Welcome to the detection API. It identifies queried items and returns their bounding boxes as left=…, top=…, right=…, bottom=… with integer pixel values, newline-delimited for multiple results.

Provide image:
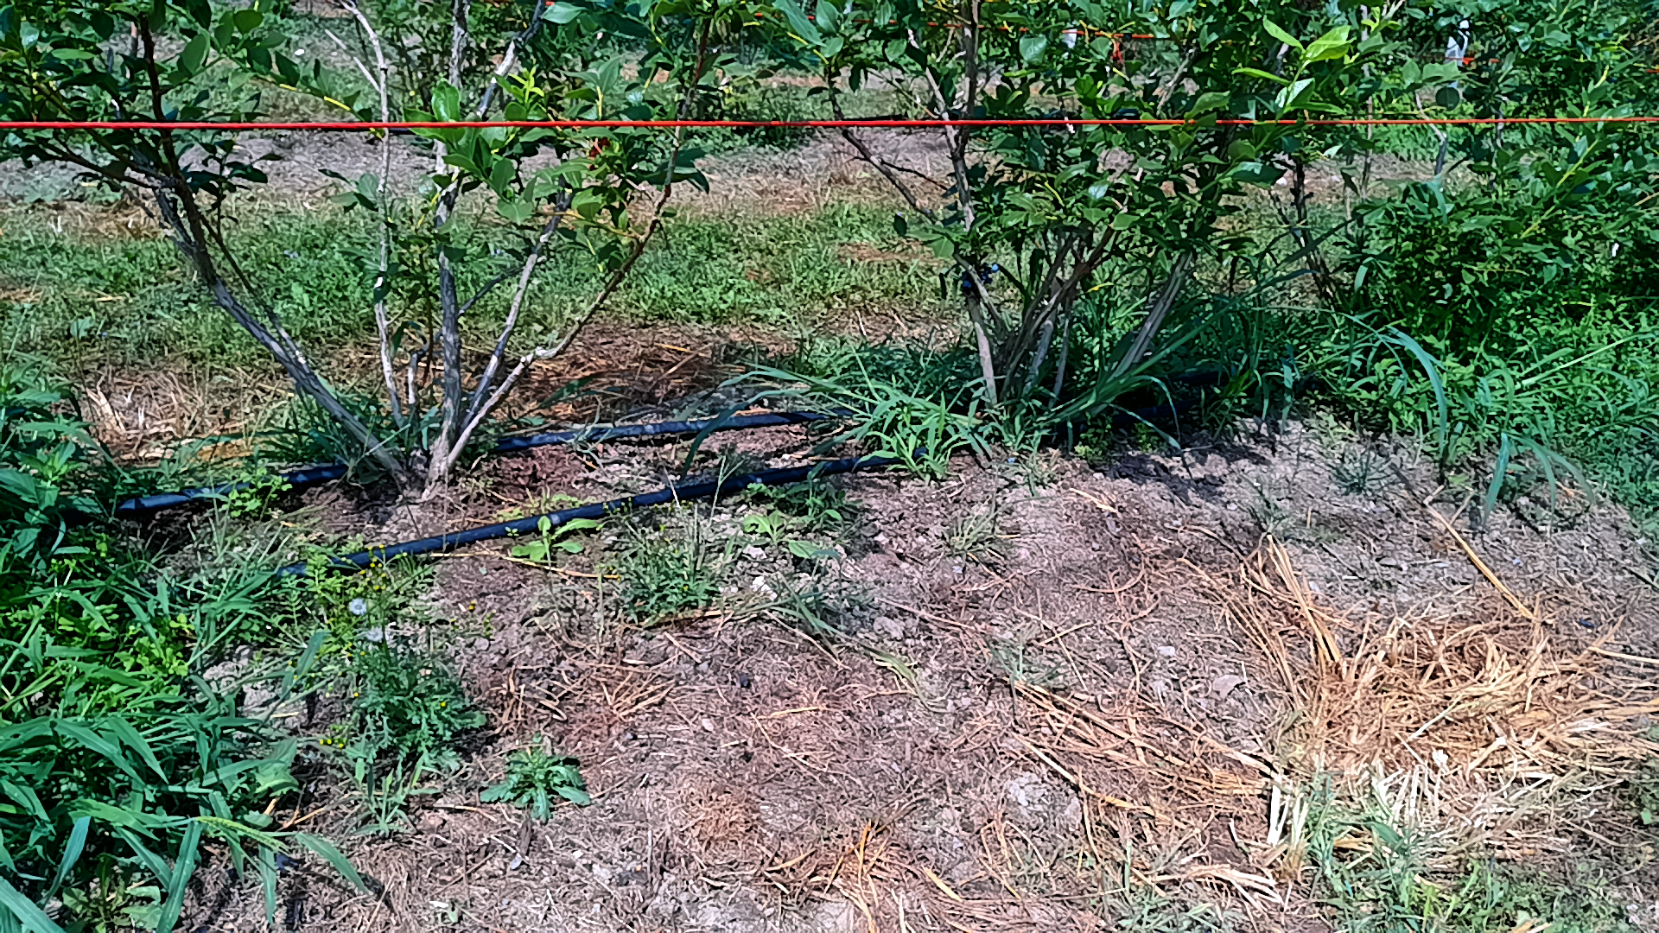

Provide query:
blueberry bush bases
left=907, top=248, right=1209, bottom=478
left=211, top=284, right=597, bottom=554
left=1291, top=187, right=1486, bottom=352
